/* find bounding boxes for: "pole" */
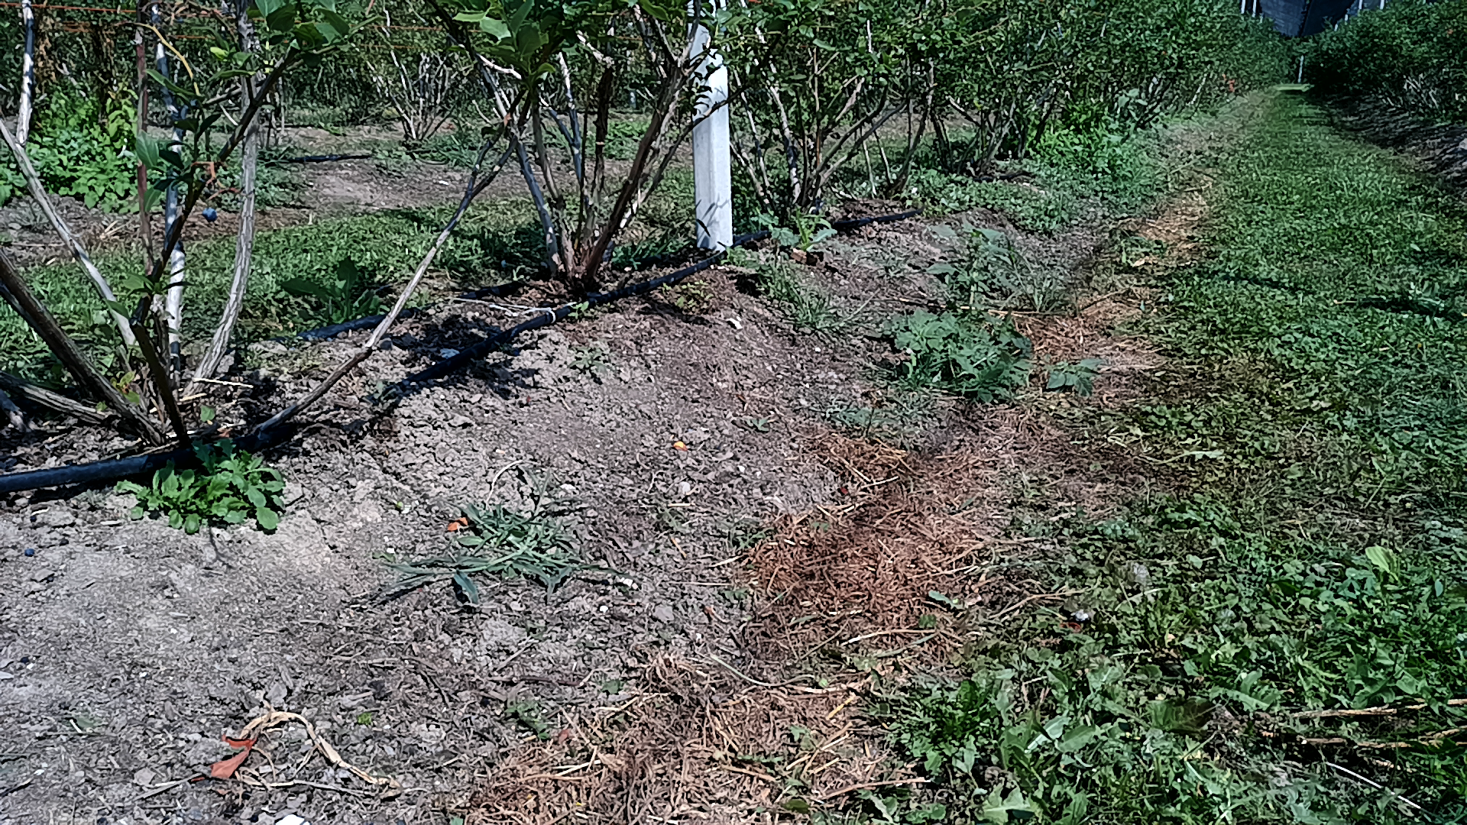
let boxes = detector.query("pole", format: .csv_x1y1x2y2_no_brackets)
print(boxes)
674,5,739,284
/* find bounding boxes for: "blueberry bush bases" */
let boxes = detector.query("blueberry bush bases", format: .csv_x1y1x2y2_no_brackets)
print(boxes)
925,127,1038,202
834,140,931,220
741,149,869,257
384,116,450,167
23,254,387,537
507,183,662,321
